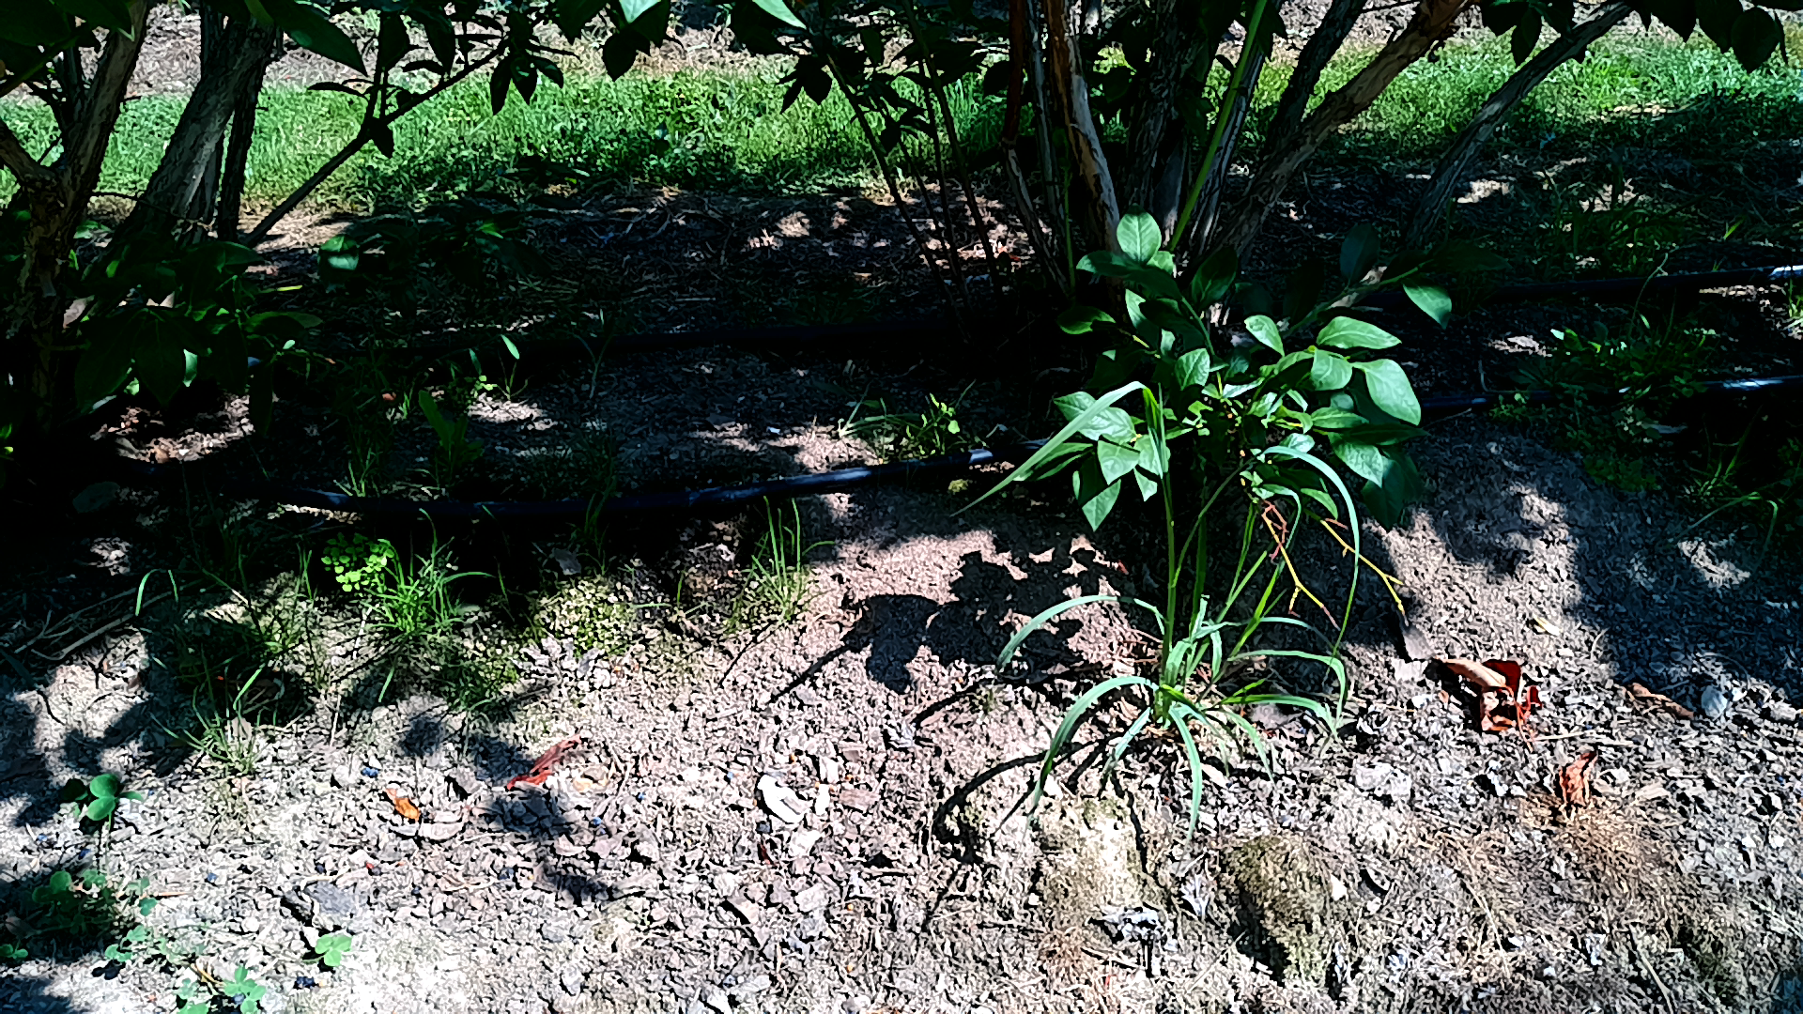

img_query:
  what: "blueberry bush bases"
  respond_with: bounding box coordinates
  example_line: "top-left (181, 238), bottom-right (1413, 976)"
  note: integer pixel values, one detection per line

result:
top-left (950, 93), bottom-right (1443, 540)
top-left (2, 121), bottom-right (270, 568)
